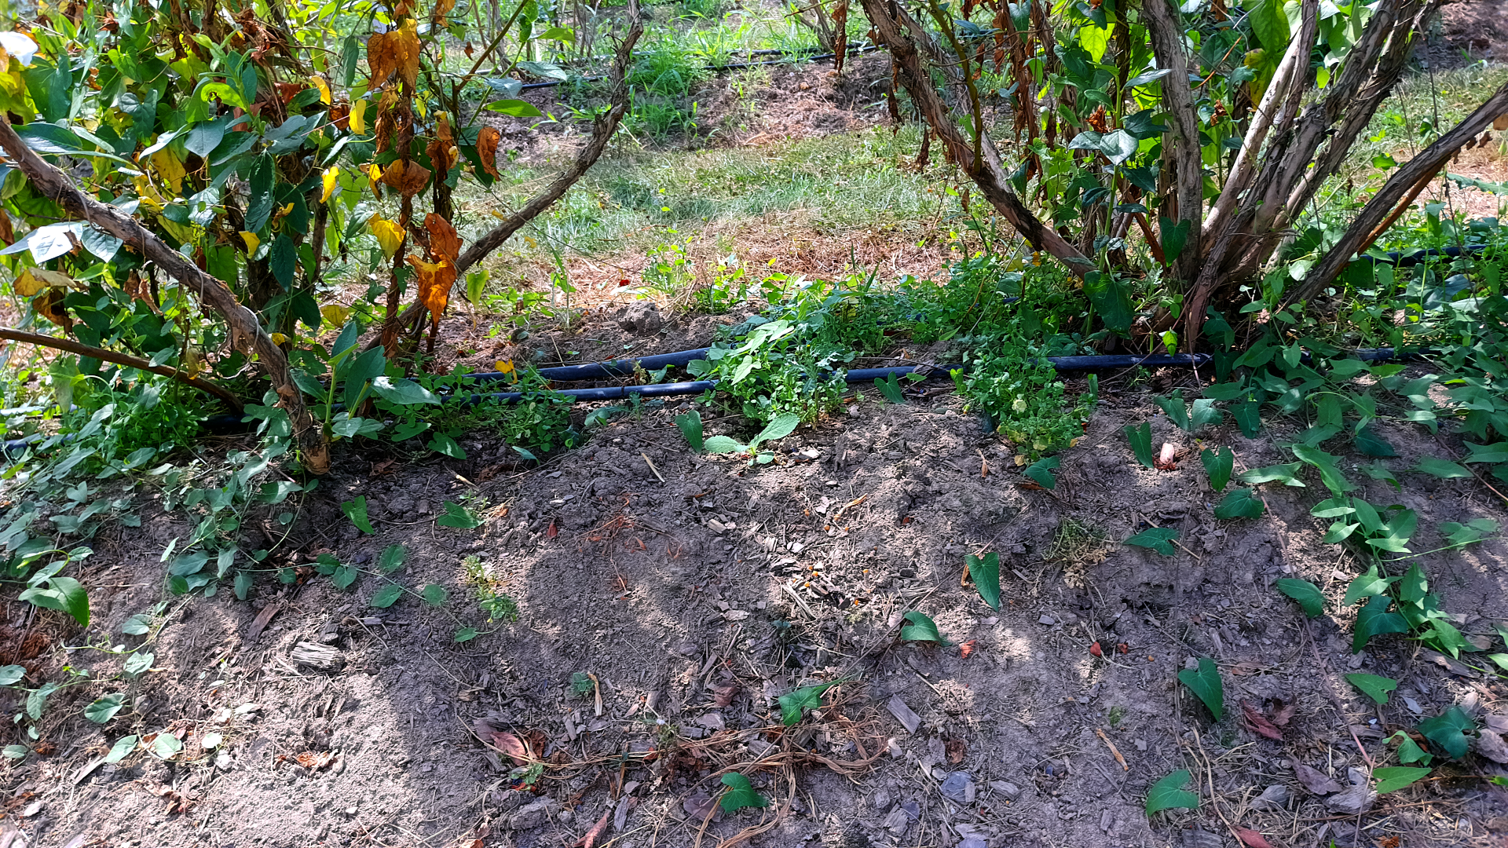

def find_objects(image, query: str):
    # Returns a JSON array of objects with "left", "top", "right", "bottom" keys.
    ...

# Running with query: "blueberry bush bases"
[
  {"left": 964, "top": 145, "right": 1432, "bottom": 437},
  {"left": 51, "top": 233, "right": 511, "bottom": 528}
]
